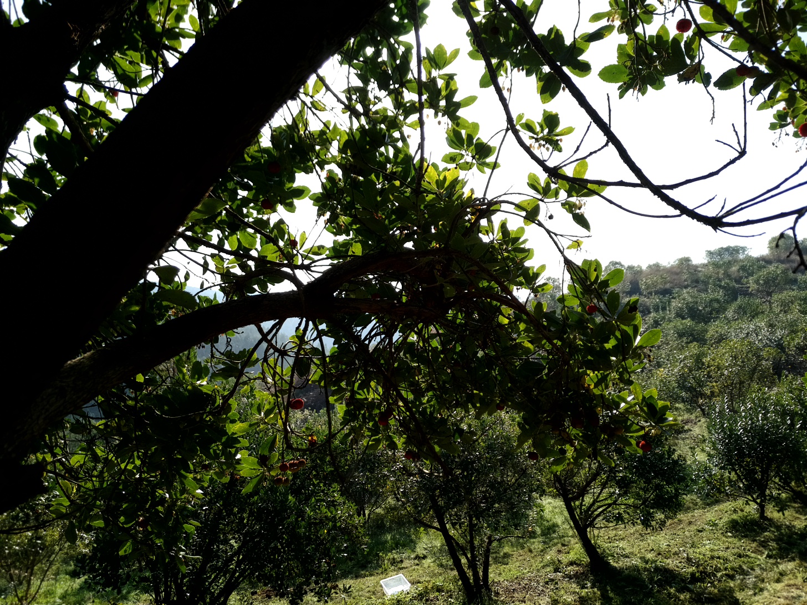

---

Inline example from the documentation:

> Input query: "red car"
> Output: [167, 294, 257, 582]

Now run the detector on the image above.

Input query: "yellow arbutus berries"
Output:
[298, 459, 306, 467]
[614, 426, 624, 435]
[288, 459, 301, 473]
[282, 477, 290, 486]
[274, 476, 283, 486]
[307, 434, 318, 445]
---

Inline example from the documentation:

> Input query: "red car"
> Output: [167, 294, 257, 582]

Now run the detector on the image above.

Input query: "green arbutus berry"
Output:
[747, 66, 761, 79]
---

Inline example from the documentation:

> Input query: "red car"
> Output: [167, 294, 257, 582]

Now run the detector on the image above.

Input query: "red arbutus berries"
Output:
[639, 441, 652, 452]
[279, 462, 289, 472]
[586, 304, 597, 313]
[798, 123, 807, 137]
[405, 451, 412, 460]
[292, 398, 304, 410]
[528, 451, 539, 460]
[676, 19, 692, 33]
[378, 416, 388, 426]
[261, 199, 273, 209]
[736, 64, 749, 76]
[496, 403, 505, 411]
[289, 239, 298, 247]
[112, 91, 119, 97]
